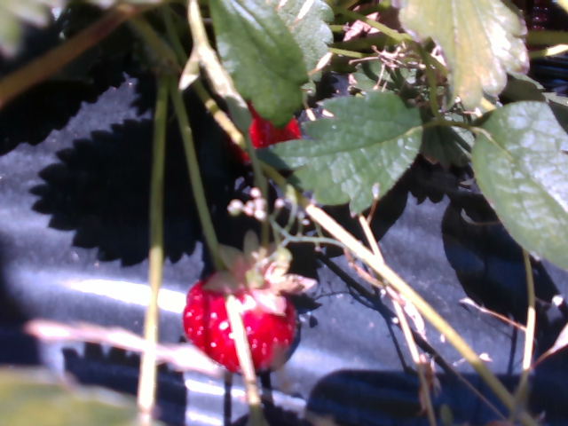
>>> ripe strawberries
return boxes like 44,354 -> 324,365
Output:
234,84 -> 314,173
178,261 -> 308,380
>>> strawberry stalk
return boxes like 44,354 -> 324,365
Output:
226,181 -> 278,306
